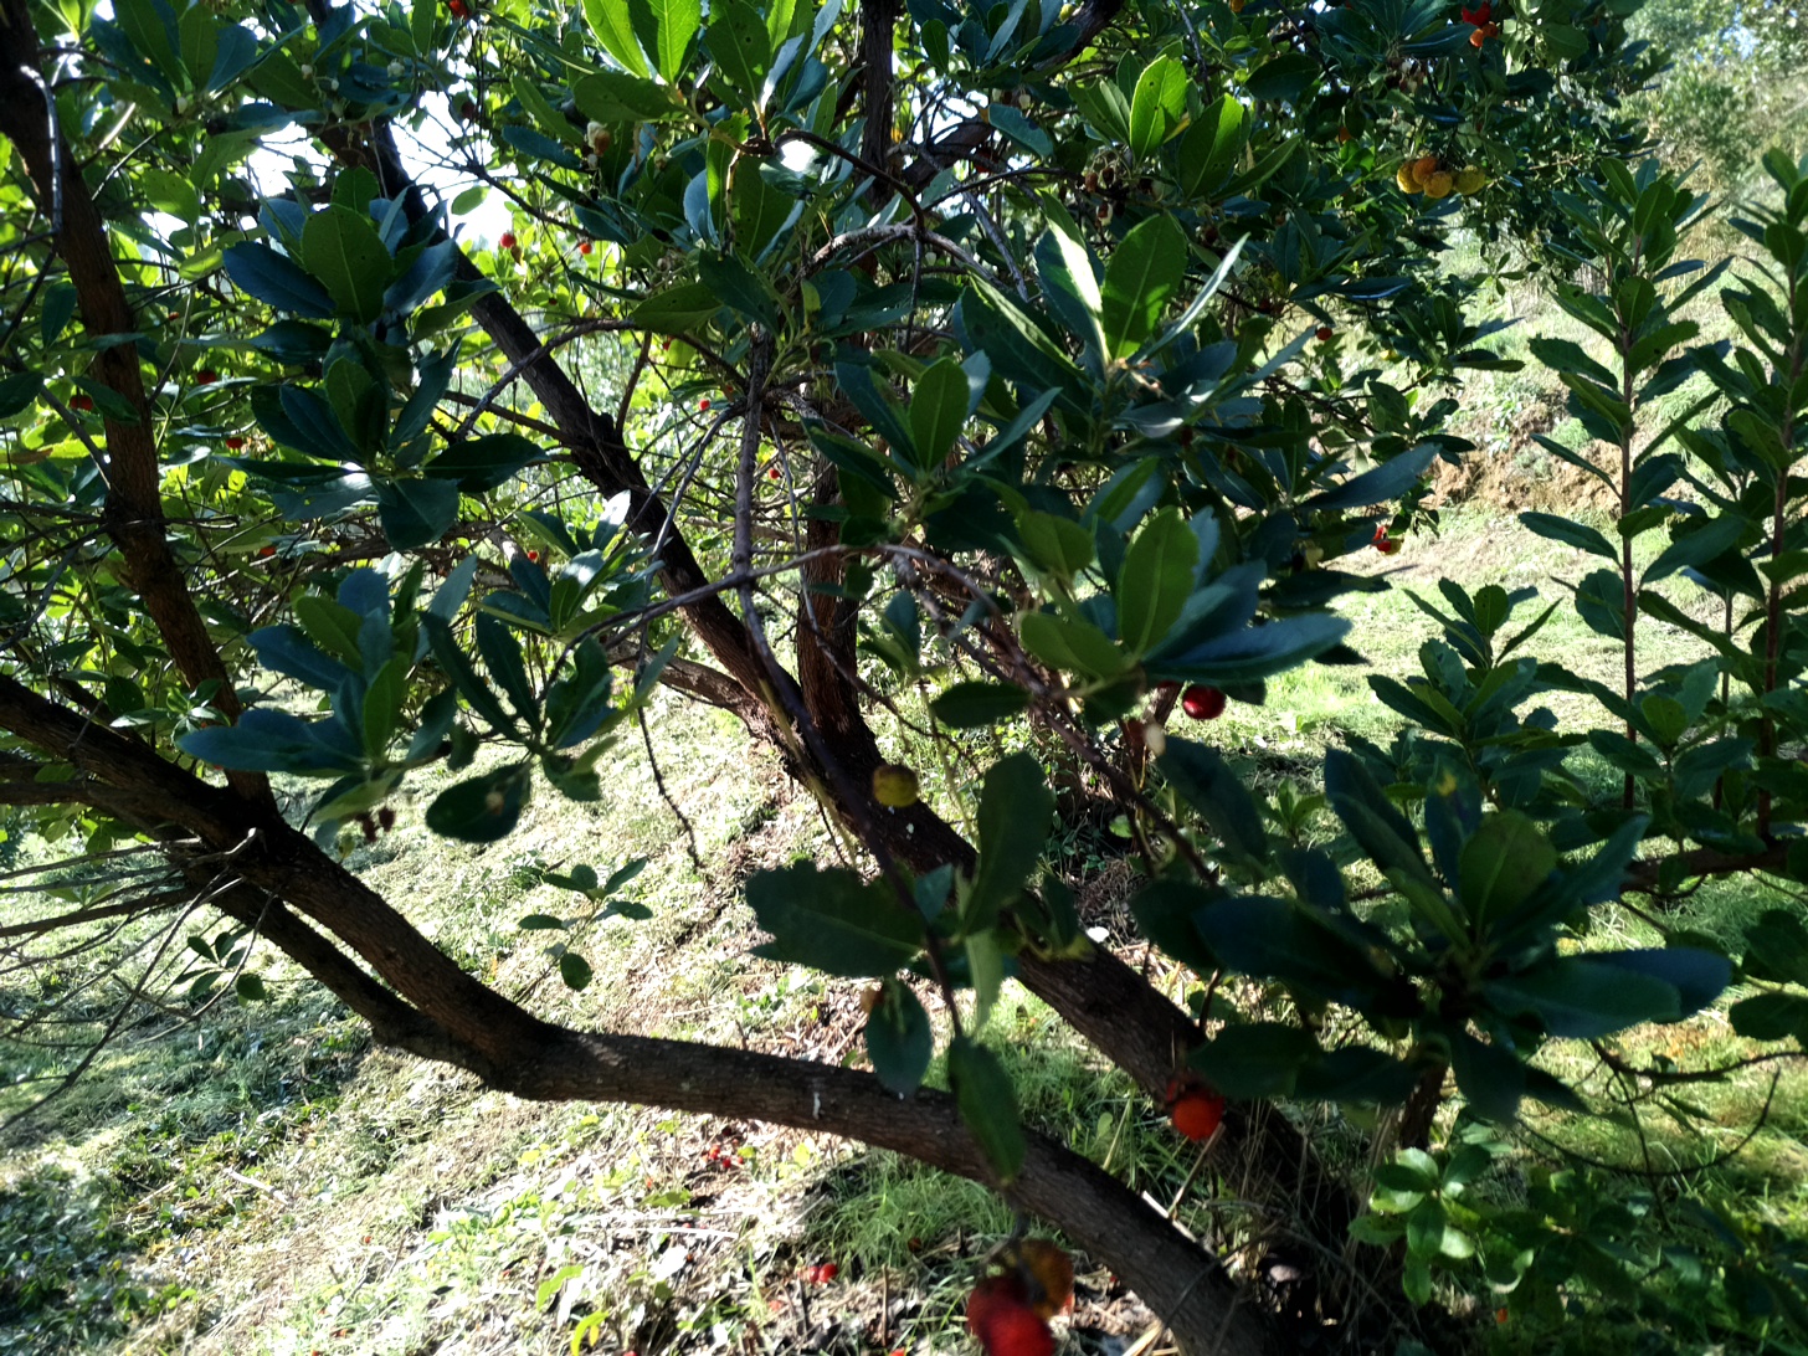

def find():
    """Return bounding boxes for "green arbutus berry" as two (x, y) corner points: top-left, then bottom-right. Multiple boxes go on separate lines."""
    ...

(1455, 164), (1486, 197)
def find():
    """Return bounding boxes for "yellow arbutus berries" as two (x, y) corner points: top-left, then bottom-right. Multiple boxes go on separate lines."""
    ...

(1397, 160), (1424, 193)
(1413, 157), (1435, 184)
(1007, 1238), (1075, 1315)
(873, 764), (919, 808)
(1424, 171), (1452, 198)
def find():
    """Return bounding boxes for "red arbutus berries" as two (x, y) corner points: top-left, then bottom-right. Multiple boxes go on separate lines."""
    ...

(699, 399), (710, 411)
(771, 469), (781, 479)
(580, 243), (592, 253)
(197, 370), (218, 385)
(260, 546), (276, 557)
(1171, 1089), (1224, 1143)
(1316, 326), (1333, 339)
(1373, 526), (1397, 551)
(449, 0), (470, 18)
(1483, 21), (1498, 38)
(1182, 682), (1225, 718)
(226, 436), (243, 448)
(1462, 2), (1490, 27)
(663, 341), (671, 350)
(70, 395), (93, 413)
(964, 1273), (1027, 1342)
(1470, 29), (1486, 47)
(501, 233), (515, 248)
(988, 1306), (1055, 1356)
(526, 550), (538, 560)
